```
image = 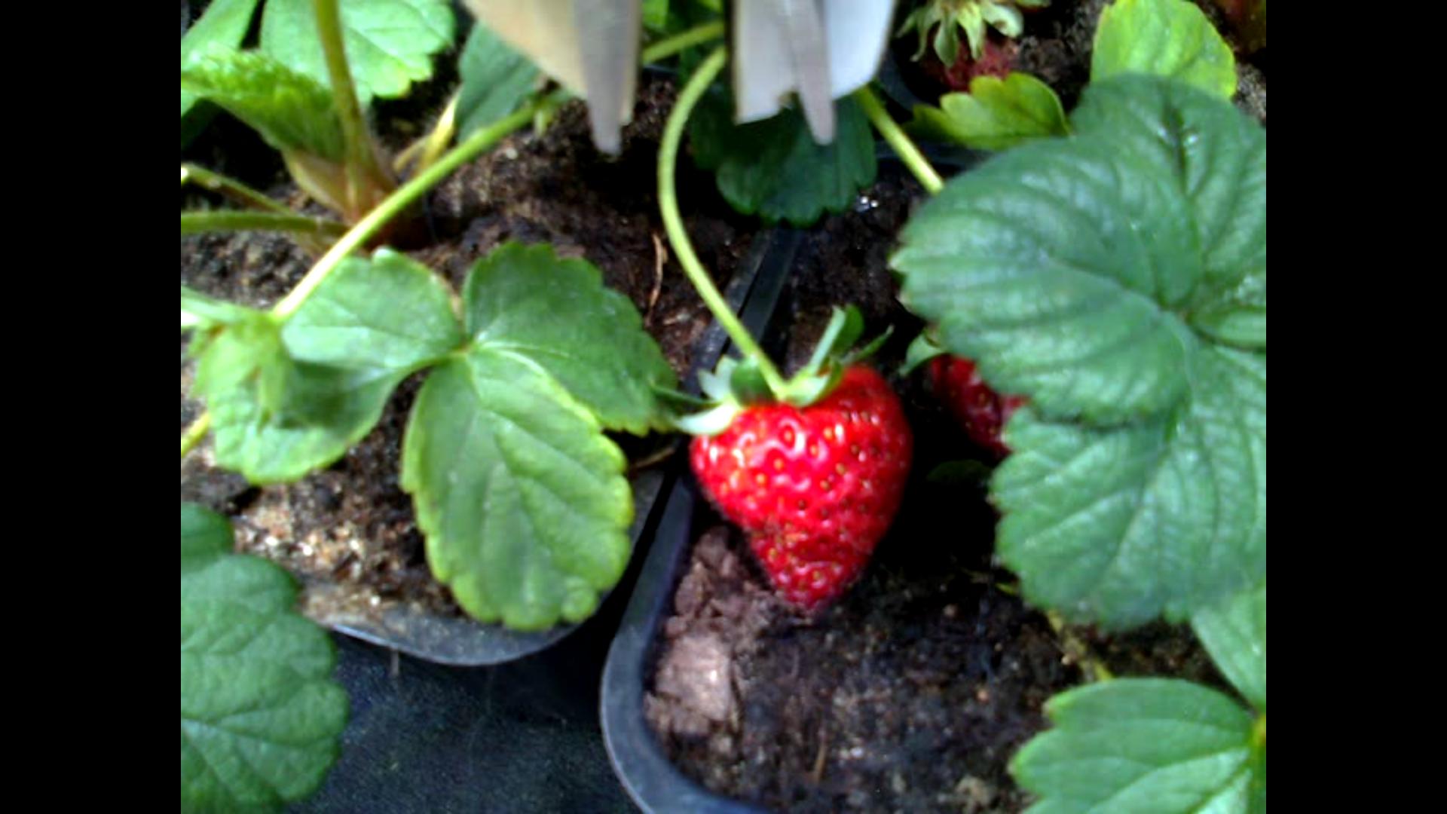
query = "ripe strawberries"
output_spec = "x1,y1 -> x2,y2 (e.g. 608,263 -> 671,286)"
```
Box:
665,352 -> 943,629
888,239 -> 1205,467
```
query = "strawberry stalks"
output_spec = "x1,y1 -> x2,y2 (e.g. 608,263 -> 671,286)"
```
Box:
639,103 -> 852,438
861,93 -> 1035,325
